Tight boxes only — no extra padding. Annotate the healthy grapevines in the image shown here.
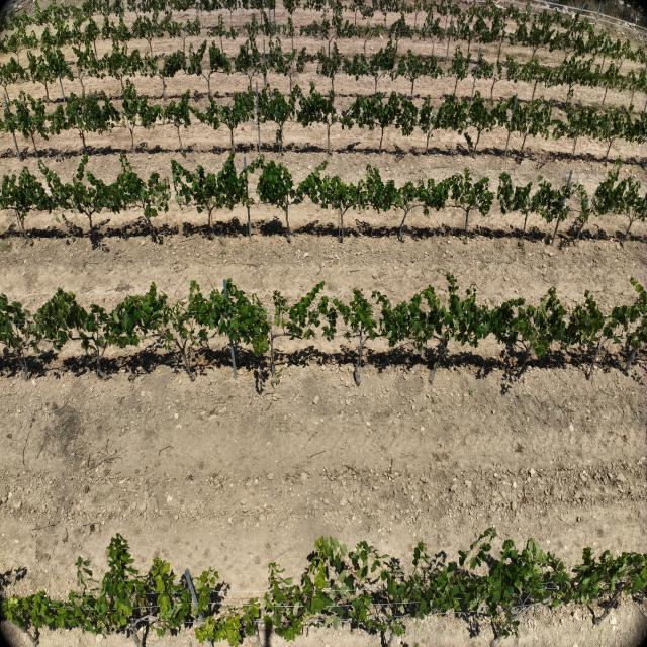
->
[381,270,490,391]
[33,282,155,385]
[563,274,647,389]
[215,275,328,390]
[477,282,571,376]
[0,287,34,390]
[120,274,236,388]
[310,292,409,394]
